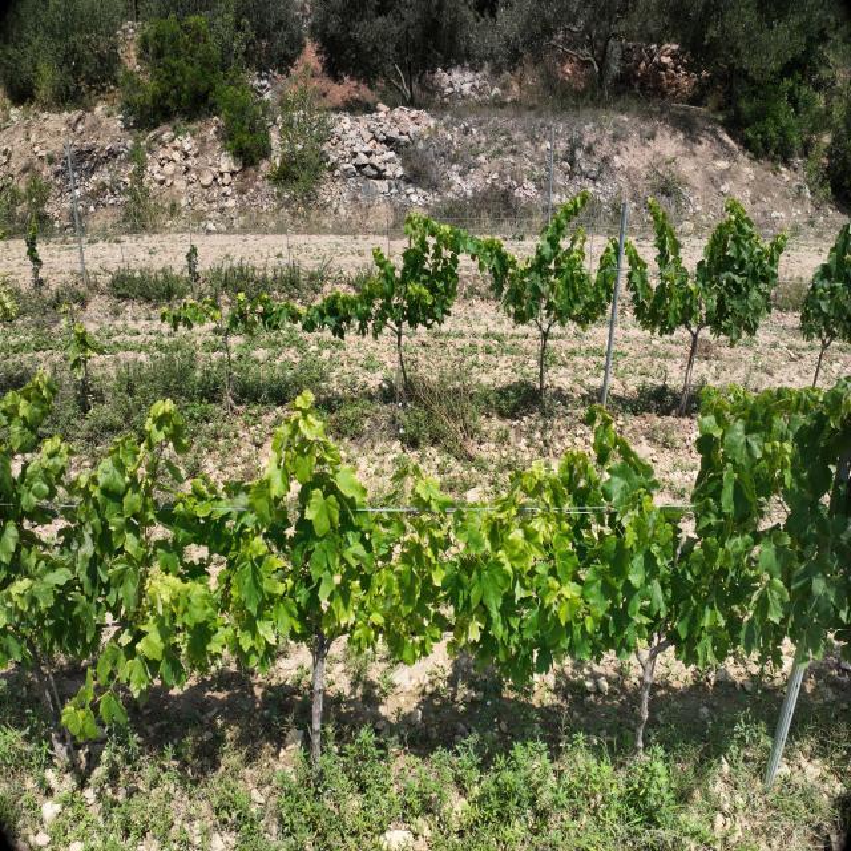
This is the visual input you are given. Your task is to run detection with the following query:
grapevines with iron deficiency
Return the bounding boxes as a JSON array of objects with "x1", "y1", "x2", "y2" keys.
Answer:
[
  {"x1": 0, "y1": 398, "x2": 211, "y2": 803},
  {"x1": 214, "y1": 400, "x2": 452, "y2": 813},
  {"x1": 469, "y1": 422, "x2": 834, "y2": 800}
]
